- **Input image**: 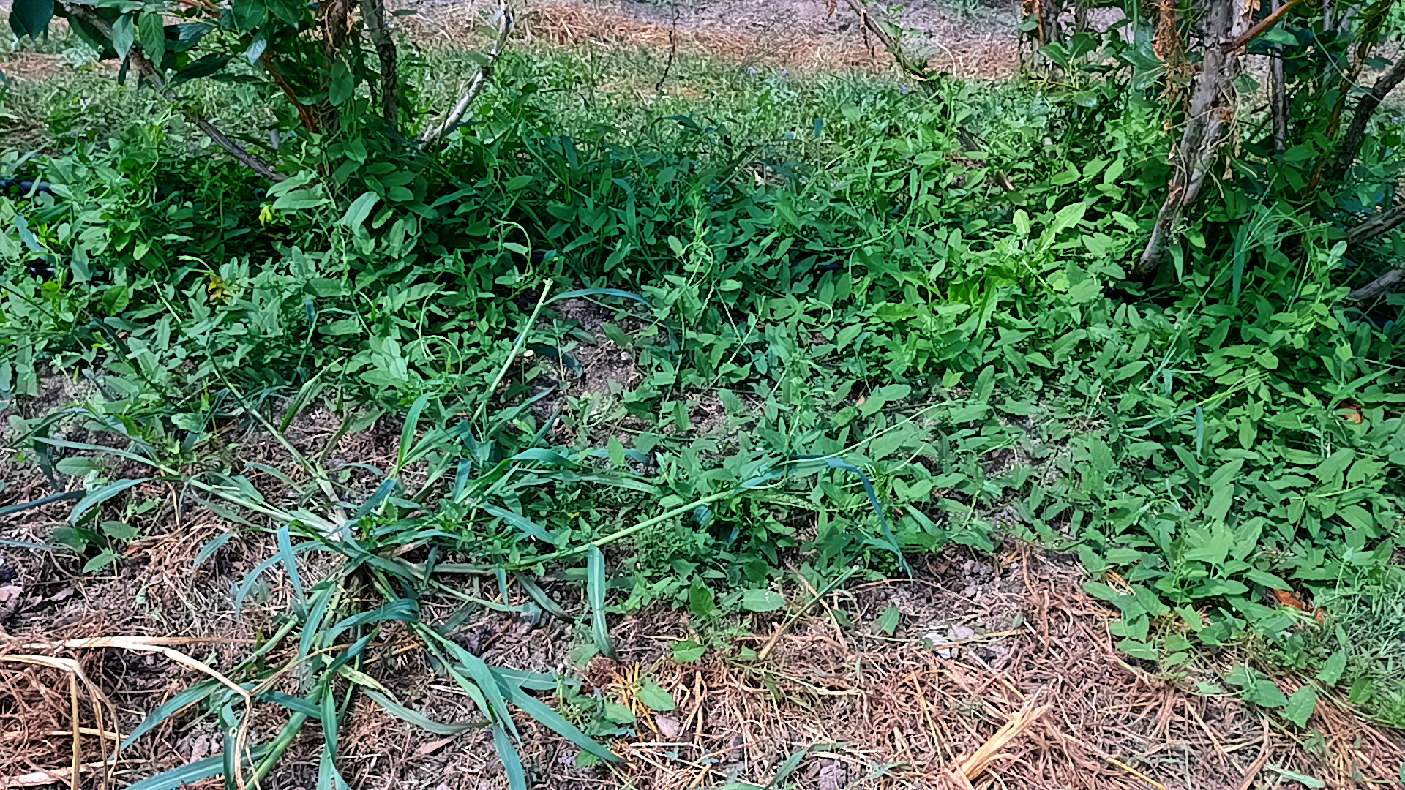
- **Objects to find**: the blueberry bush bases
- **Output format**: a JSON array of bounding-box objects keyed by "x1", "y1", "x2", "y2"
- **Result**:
[
  {"x1": 217, "y1": 36, "x2": 509, "y2": 320},
  {"x1": 1041, "y1": 77, "x2": 1401, "y2": 372}
]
